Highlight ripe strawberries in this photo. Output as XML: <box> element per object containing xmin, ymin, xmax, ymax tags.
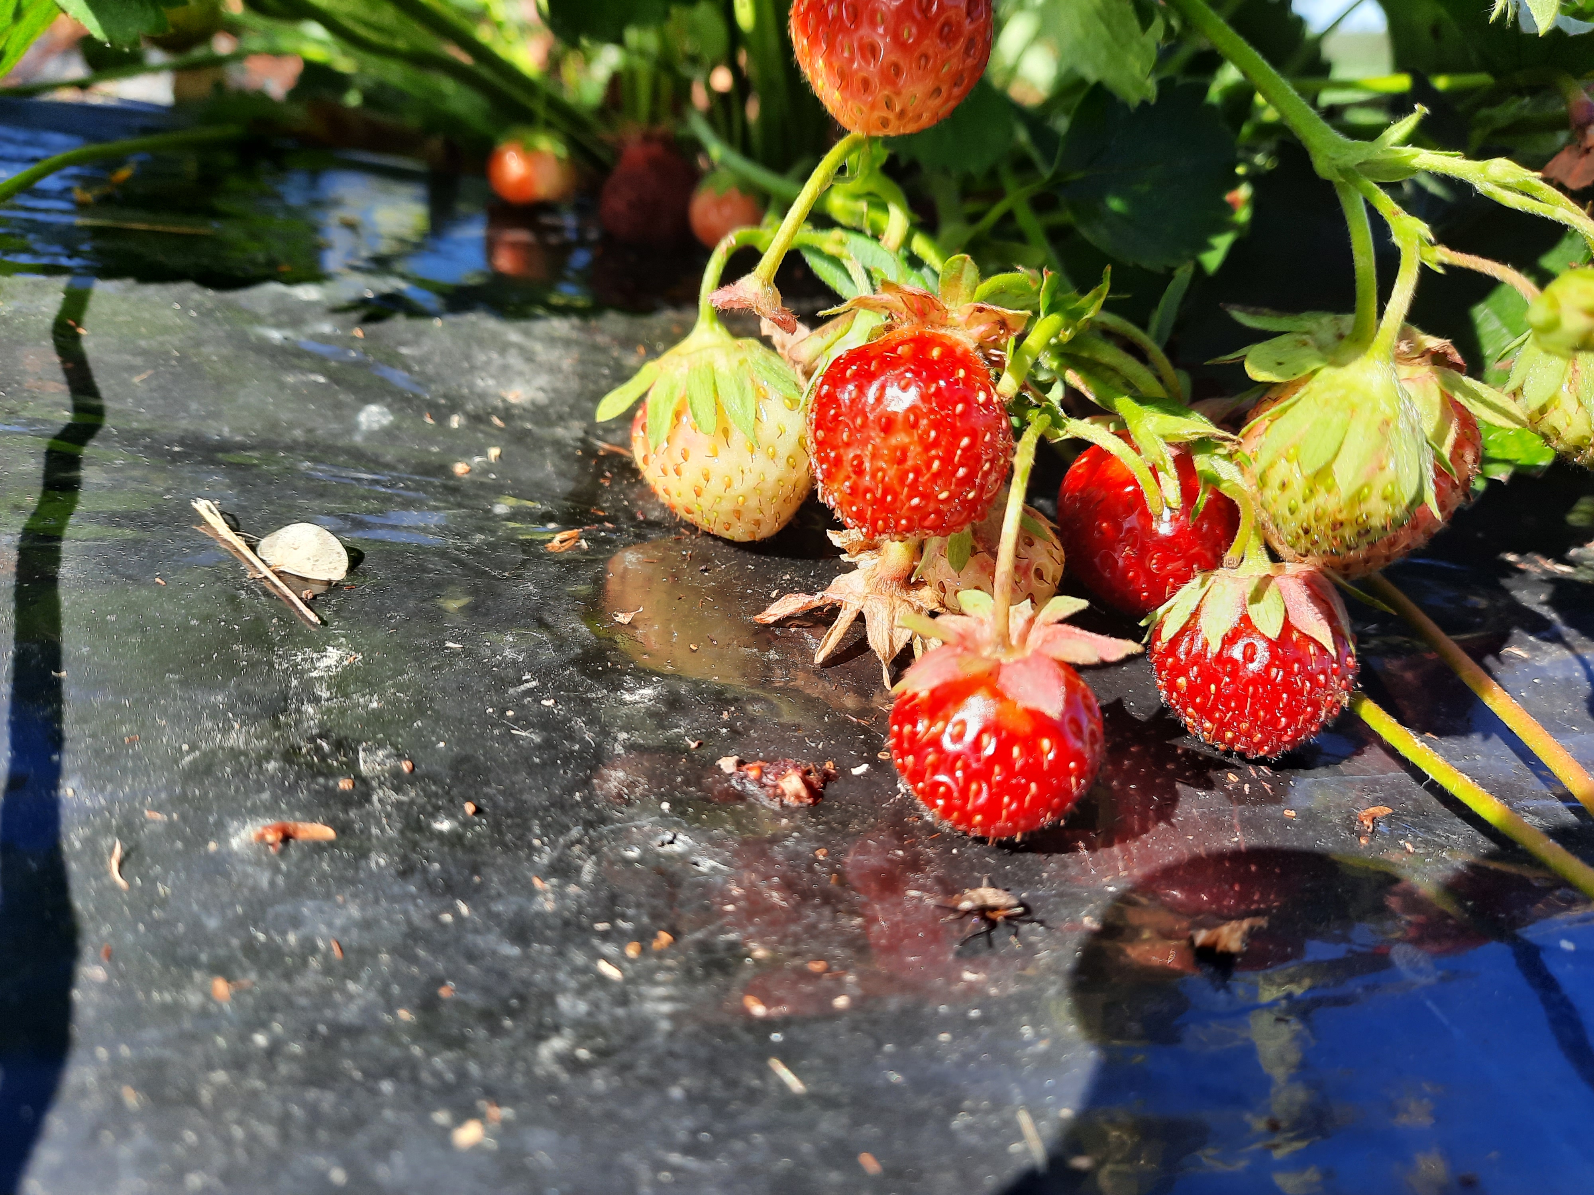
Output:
<box><xmin>816</xmin><ymin>0</ymin><xmax>978</xmax><ymax>137</ymax></box>
<box><xmin>1161</xmin><ymin>567</ymin><xmax>1340</xmax><ymax>728</ymax></box>
<box><xmin>1066</xmin><ymin>437</ymin><xmax>1227</xmax><ymax>592</ymax></box>
<box><xmin>829</xmin><ymin>339</ymin><xmax>1033</xmax><ymax>542</ymax></box>
<box><xmin>901</xmin><ymin>650</ymin><xmax>1070</xmax><ymax>813</ymax></box>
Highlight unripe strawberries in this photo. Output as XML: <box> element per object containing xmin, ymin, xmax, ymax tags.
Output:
<box><xmin>630</xmin><ymin>349</ymin><xmax>810</xmax><ymax>533</ymax></box>
<box><xmin>1257</xmin><ymin>357</ymin><xmax>1449</xmax><ymax>555</ymax></box>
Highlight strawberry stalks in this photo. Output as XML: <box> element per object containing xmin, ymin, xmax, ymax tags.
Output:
<box><xmin>693</xmin><ymin>229</ymin><xmax>751</xmax><ymax>379</ymax></box>
<box><xmin>1367</xmin><ymin>236</ymin><xmax>1434</xmax><ymax>389</ymax></box>
<box><xmin>998</xmin><ymin>446</ymin><xmax>1029</xmax><ymax>669</ymax></box>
